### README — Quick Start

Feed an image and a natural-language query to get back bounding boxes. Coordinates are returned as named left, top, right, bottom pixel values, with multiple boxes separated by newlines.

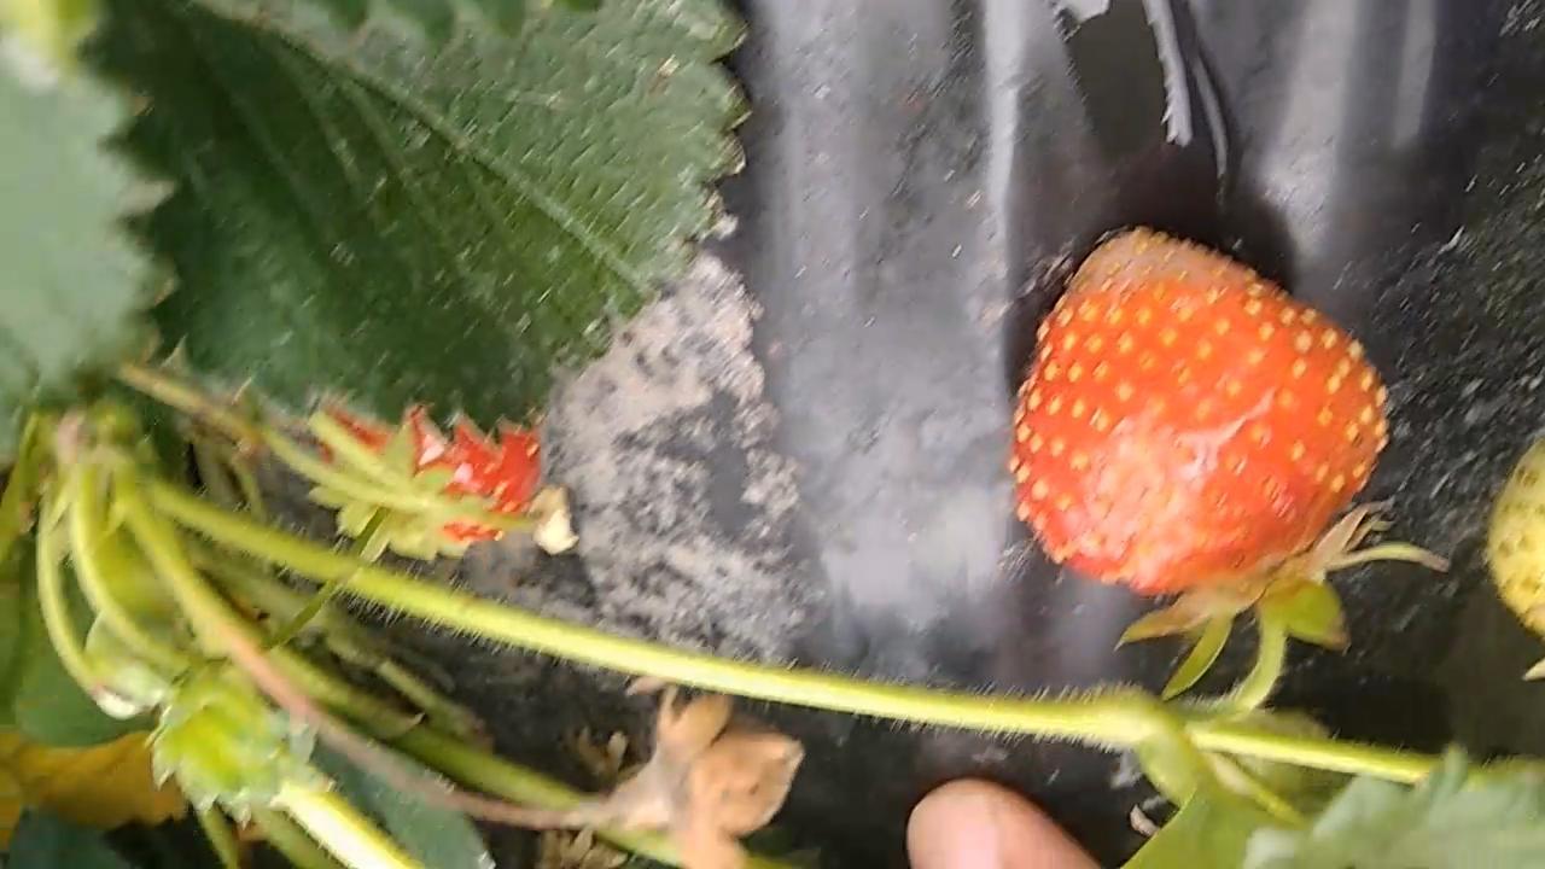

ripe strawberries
left=309, top=352, right=550, bottom=560
left=1016, top=230, right=1395, bottom=590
